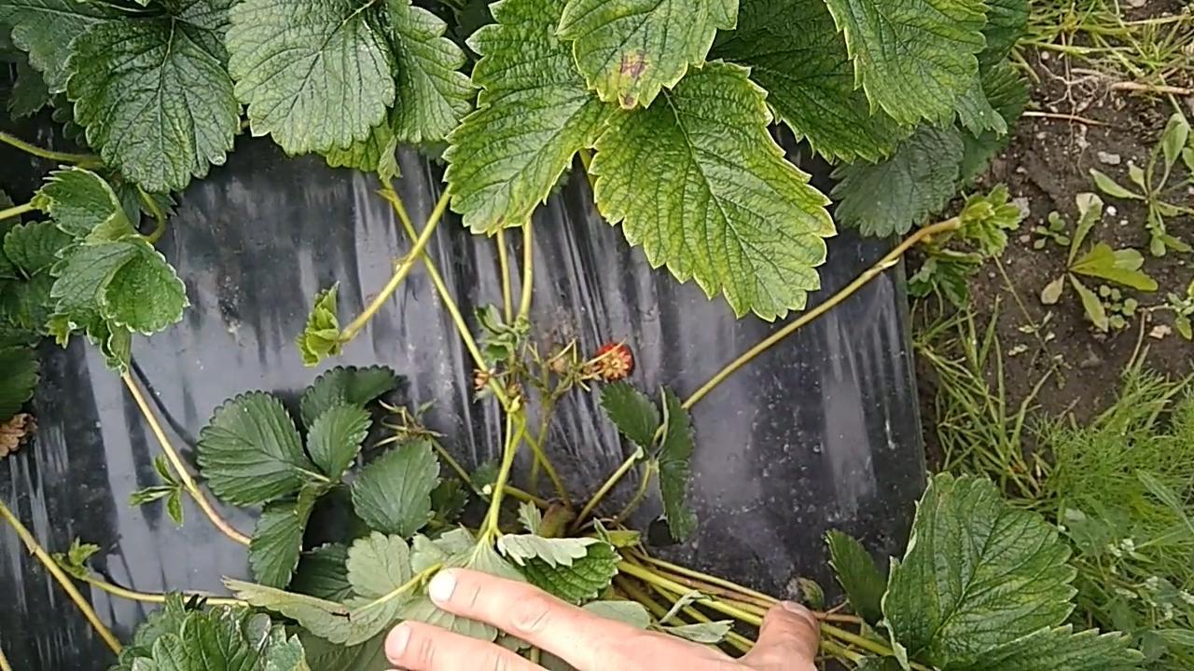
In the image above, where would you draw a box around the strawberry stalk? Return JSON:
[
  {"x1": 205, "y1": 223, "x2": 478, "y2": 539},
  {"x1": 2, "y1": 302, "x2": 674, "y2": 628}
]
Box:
[{"x1": 581, "y1": 360, "x2": 628, "y2": 384}]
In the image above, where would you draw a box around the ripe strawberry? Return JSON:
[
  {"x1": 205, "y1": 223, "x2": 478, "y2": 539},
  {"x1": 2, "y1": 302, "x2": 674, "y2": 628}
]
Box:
[{"x1": 597, "y1": 339, "x2": 641, "y2": 384}]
